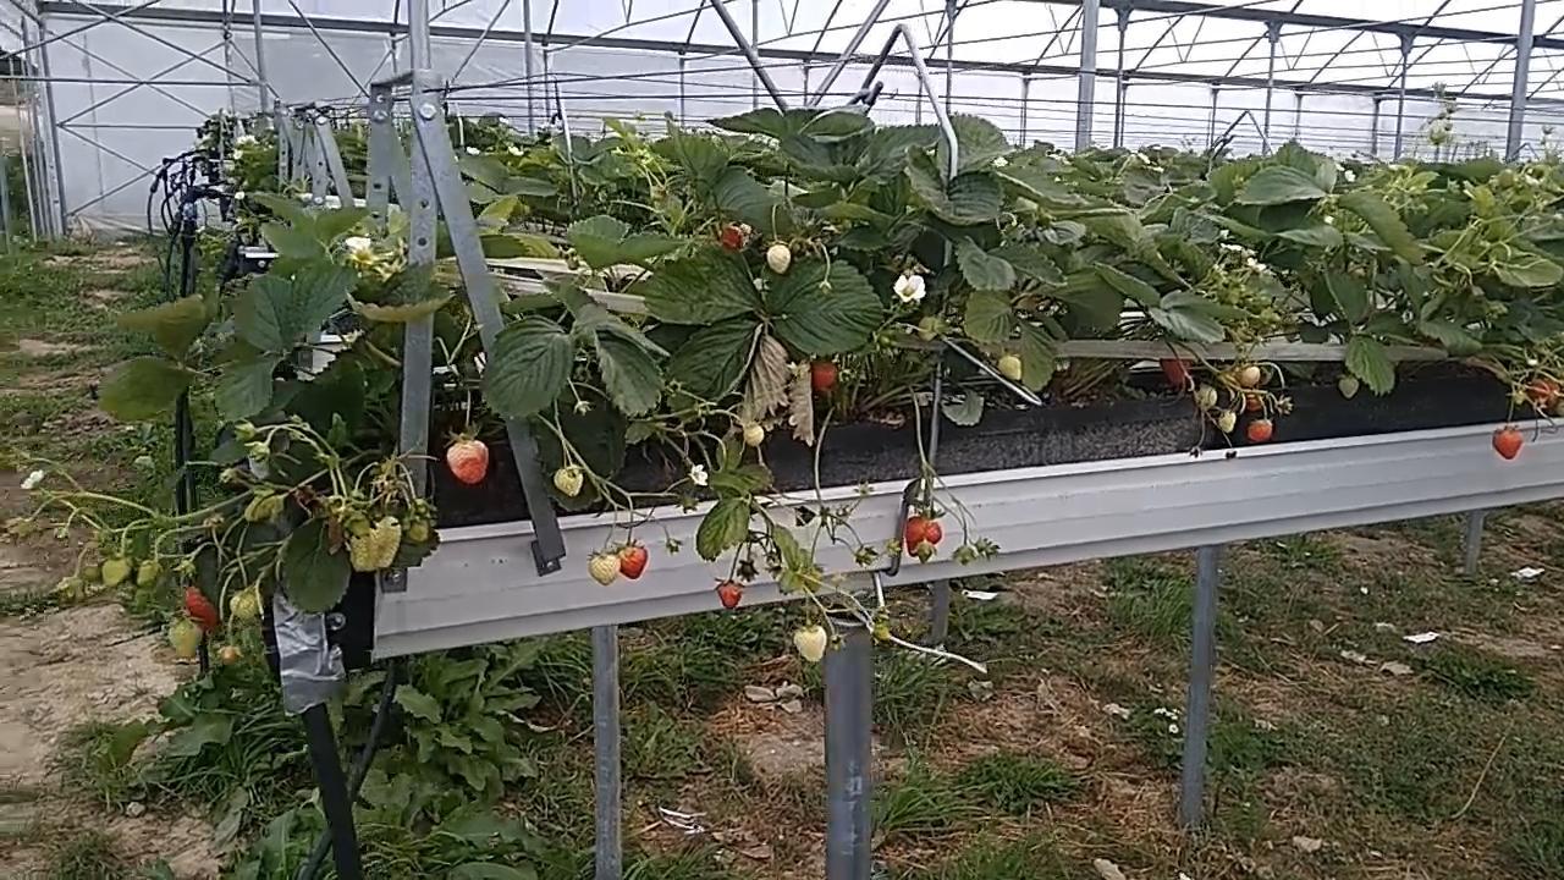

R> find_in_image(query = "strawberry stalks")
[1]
[624,498,636,555]
[726,541,740,592]
[459,391,477,450]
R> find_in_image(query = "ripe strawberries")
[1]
[916,541,938,568]
[1530,375,1562,413]
[811,361,838,390]
[906,515,941,554]
[1248,419,1273,447]
[722,216,754,259]
[1488,427,1524,461]
[184,584,222,628]
[1157,345,1193,389]
[714,582,742,609]
[613,541,648,579]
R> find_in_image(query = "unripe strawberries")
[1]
[408,519,435,541]
[919,317,942,339]
[998,354,1026,383]
[442,438,492,480]
[1199,386,1217,407]
[368,516,403,570]
[1237,365,1262,385]
[587,552,621,585]
[230,592,254,620]
[1218,413,1237,436]
[742,425,767,445]
[241,494,274,522]
[136,559,159,587]
[345,532,383,568]
[552,464,587,499]
[165,620,199,651]
[1336,378,1360,398]
[101,557,128,588]
[793,626,828,667]
[766,244,792,275]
